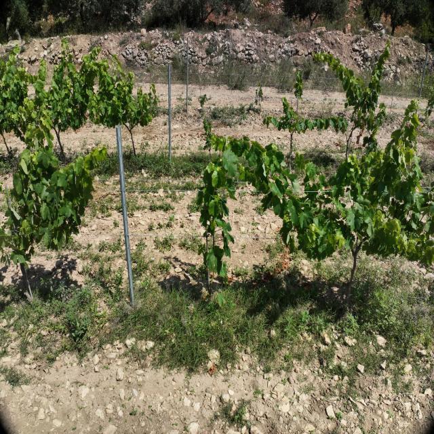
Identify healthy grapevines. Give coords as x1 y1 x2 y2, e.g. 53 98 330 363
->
191 156 241 312
0 134 107 319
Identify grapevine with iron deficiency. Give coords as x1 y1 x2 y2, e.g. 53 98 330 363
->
248 136 434 334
